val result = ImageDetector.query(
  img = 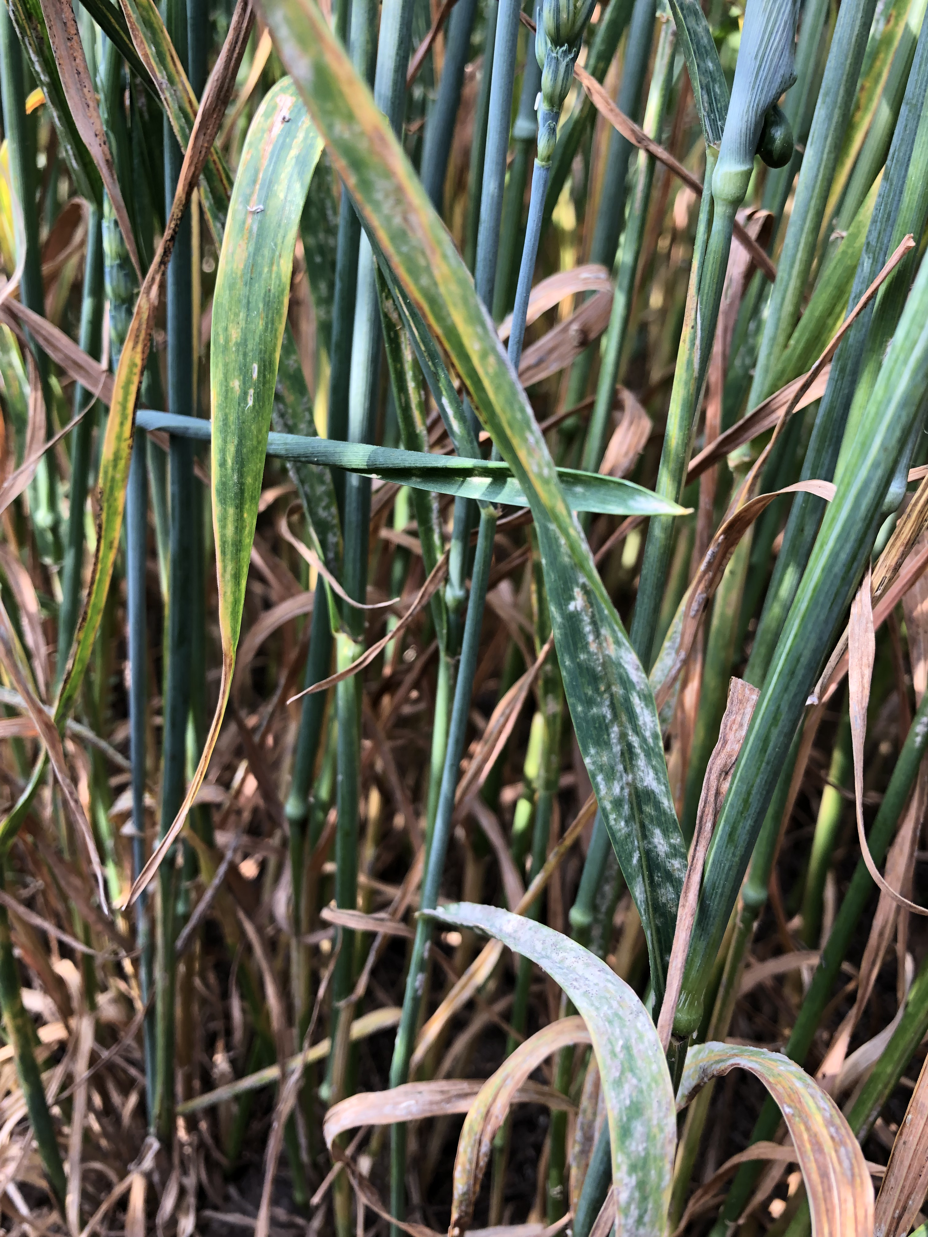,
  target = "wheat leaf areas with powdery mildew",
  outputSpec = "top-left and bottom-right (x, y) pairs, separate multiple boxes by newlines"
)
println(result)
(269, 360), (355, 587)
(436, 885), (708, 1237)
(663, 7), (740, 151)
(689, 1025), (883, 1192)
(334, 1059), (445, 1184)
(271, 17), (726, 909)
